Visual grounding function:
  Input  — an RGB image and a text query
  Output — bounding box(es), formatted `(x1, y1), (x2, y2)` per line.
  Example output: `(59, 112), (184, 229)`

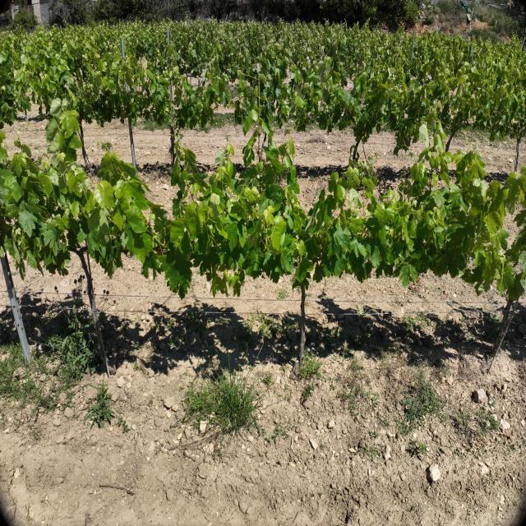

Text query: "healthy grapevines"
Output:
(0, 131), (159, 389)
(388, 144), (526, 386)
(159, 140), (389, 396)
